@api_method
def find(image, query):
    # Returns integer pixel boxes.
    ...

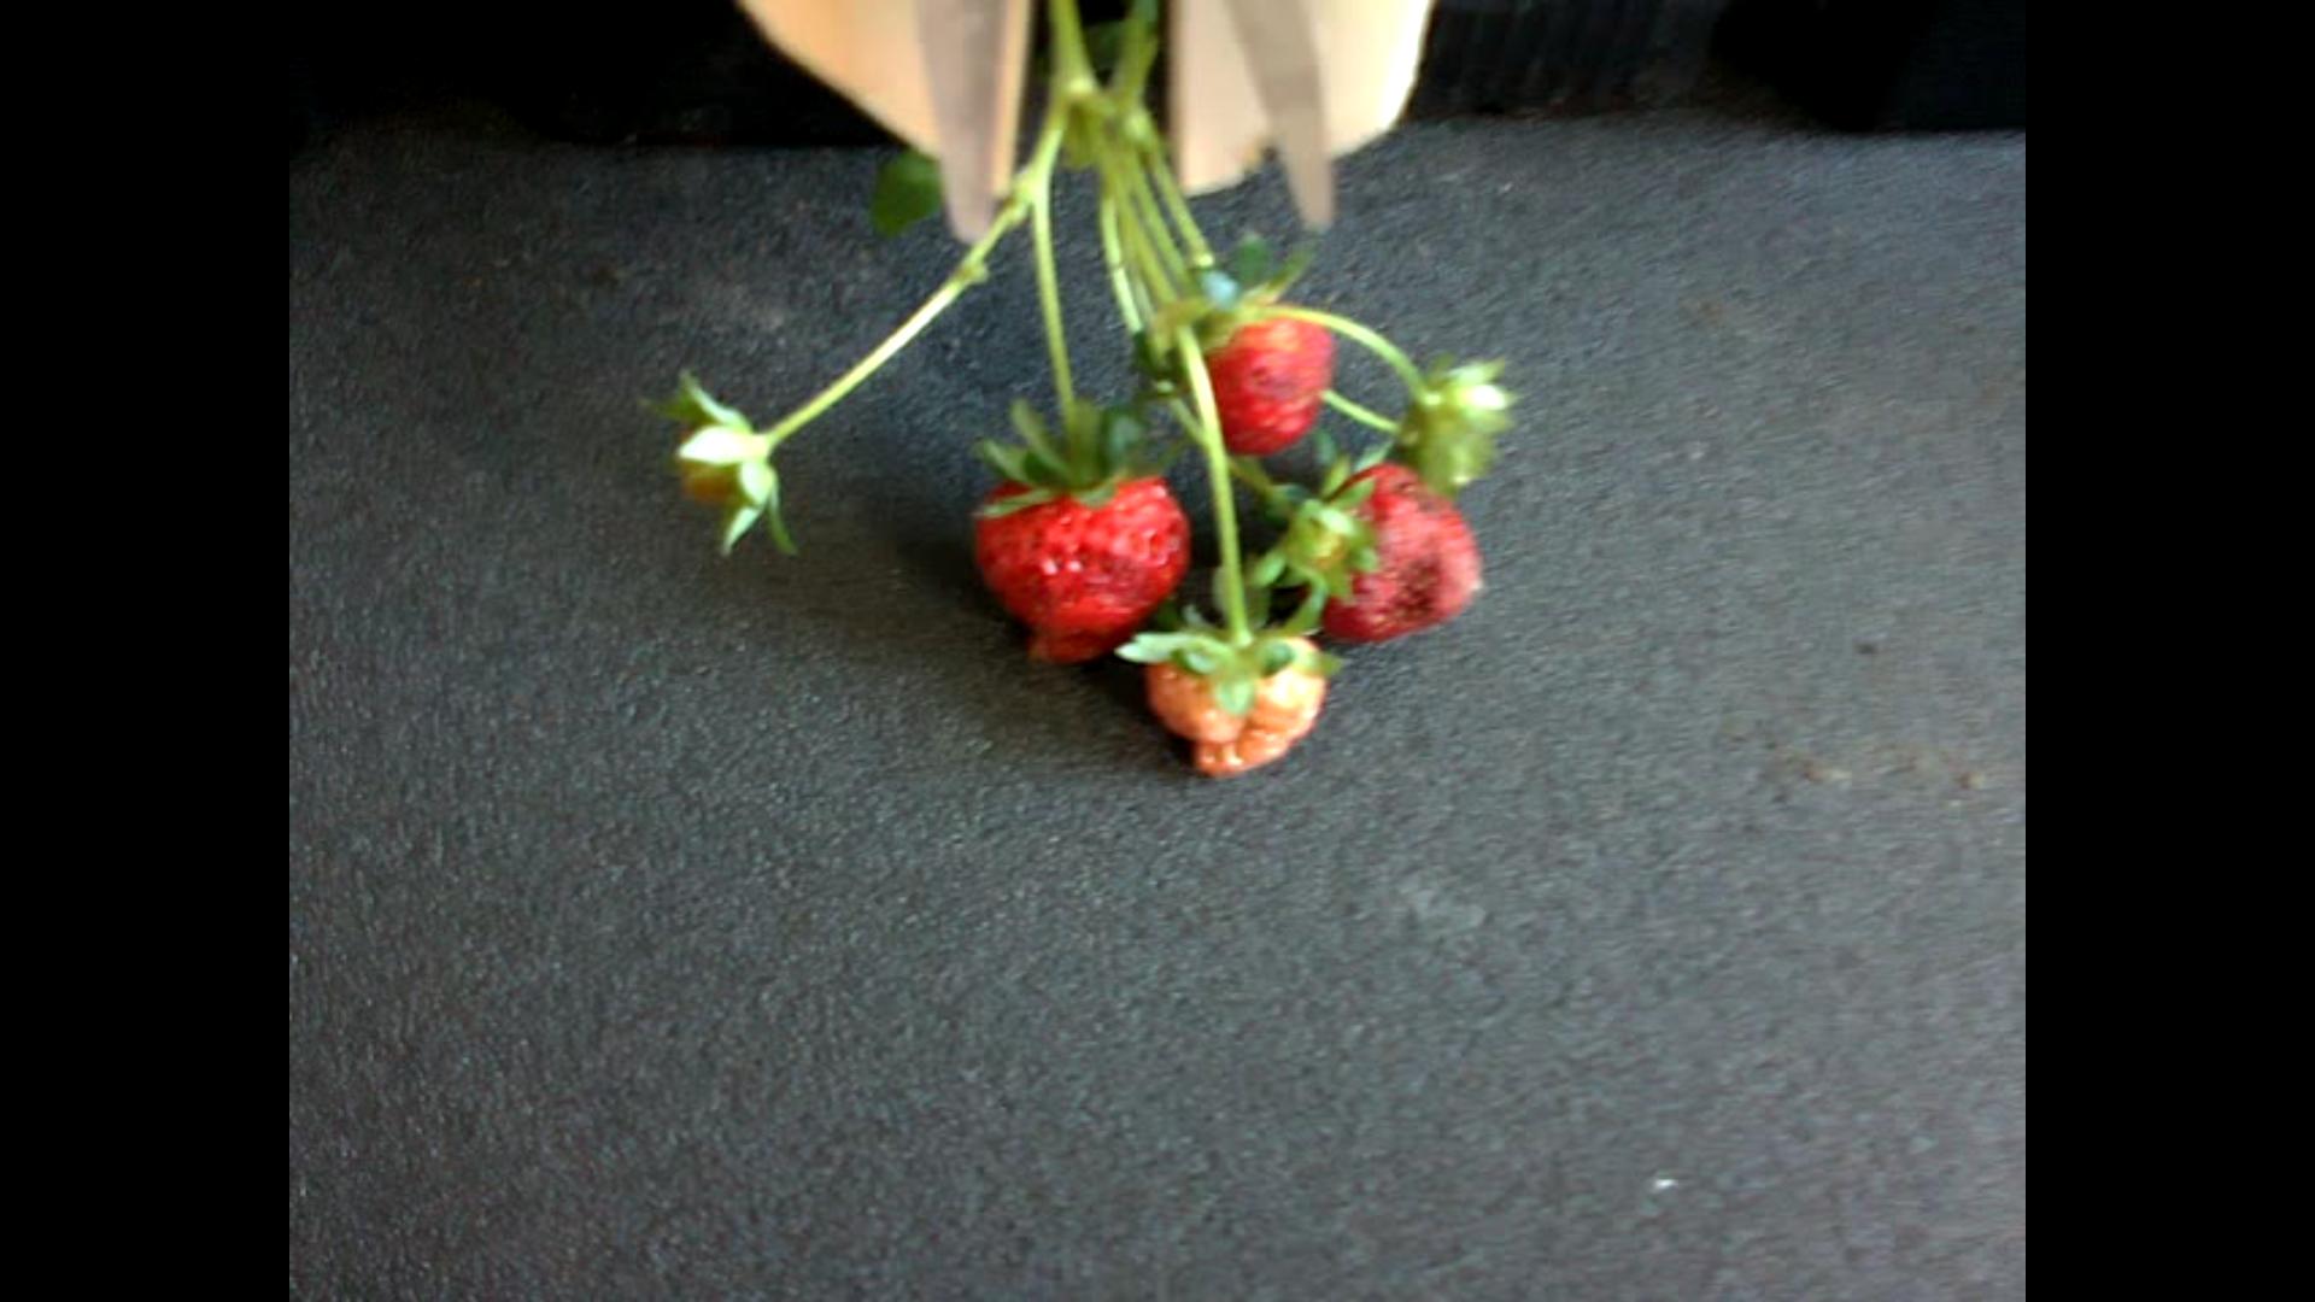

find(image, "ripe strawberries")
[956,467,1190,639]
[1283,461,1514,635]
[1174,299,1359,448]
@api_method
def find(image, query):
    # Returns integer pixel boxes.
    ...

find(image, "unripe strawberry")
[1143,623,1355,772]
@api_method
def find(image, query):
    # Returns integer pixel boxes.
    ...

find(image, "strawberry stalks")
[745,354,900,463]
[1194,422,1360,558]
[1374,318,1457,433]
[1021,213,1098,495]
[1189,204,1236,333]
[1180,448,1270,679]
